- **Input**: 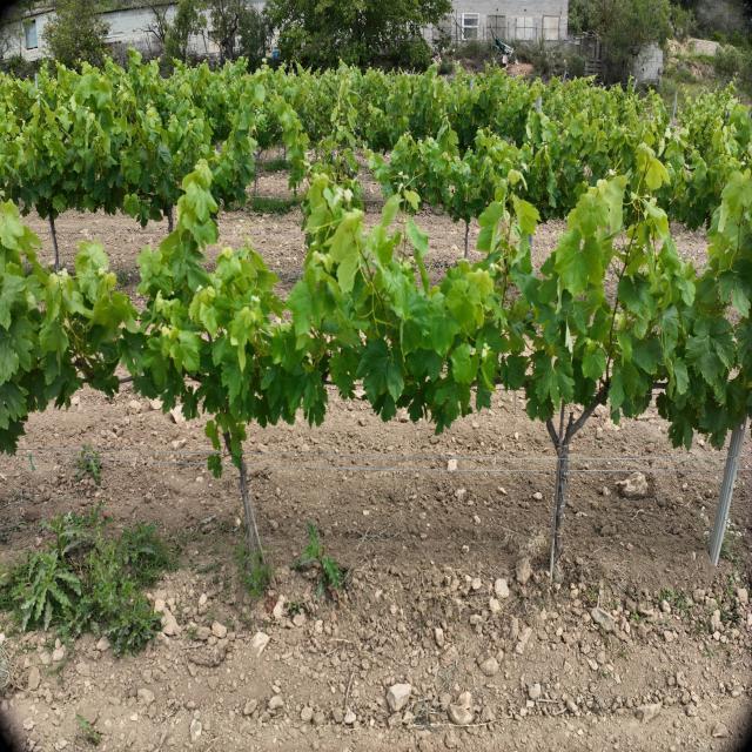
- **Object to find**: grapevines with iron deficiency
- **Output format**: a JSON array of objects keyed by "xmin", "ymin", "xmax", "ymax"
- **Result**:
[
  {"xmin": 398, "ymin": 140, "xmax": 741, "ymax": 611},
  {"xmin": 42, "ymin": 147, "xmax": 435, "ymax": 596}
]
